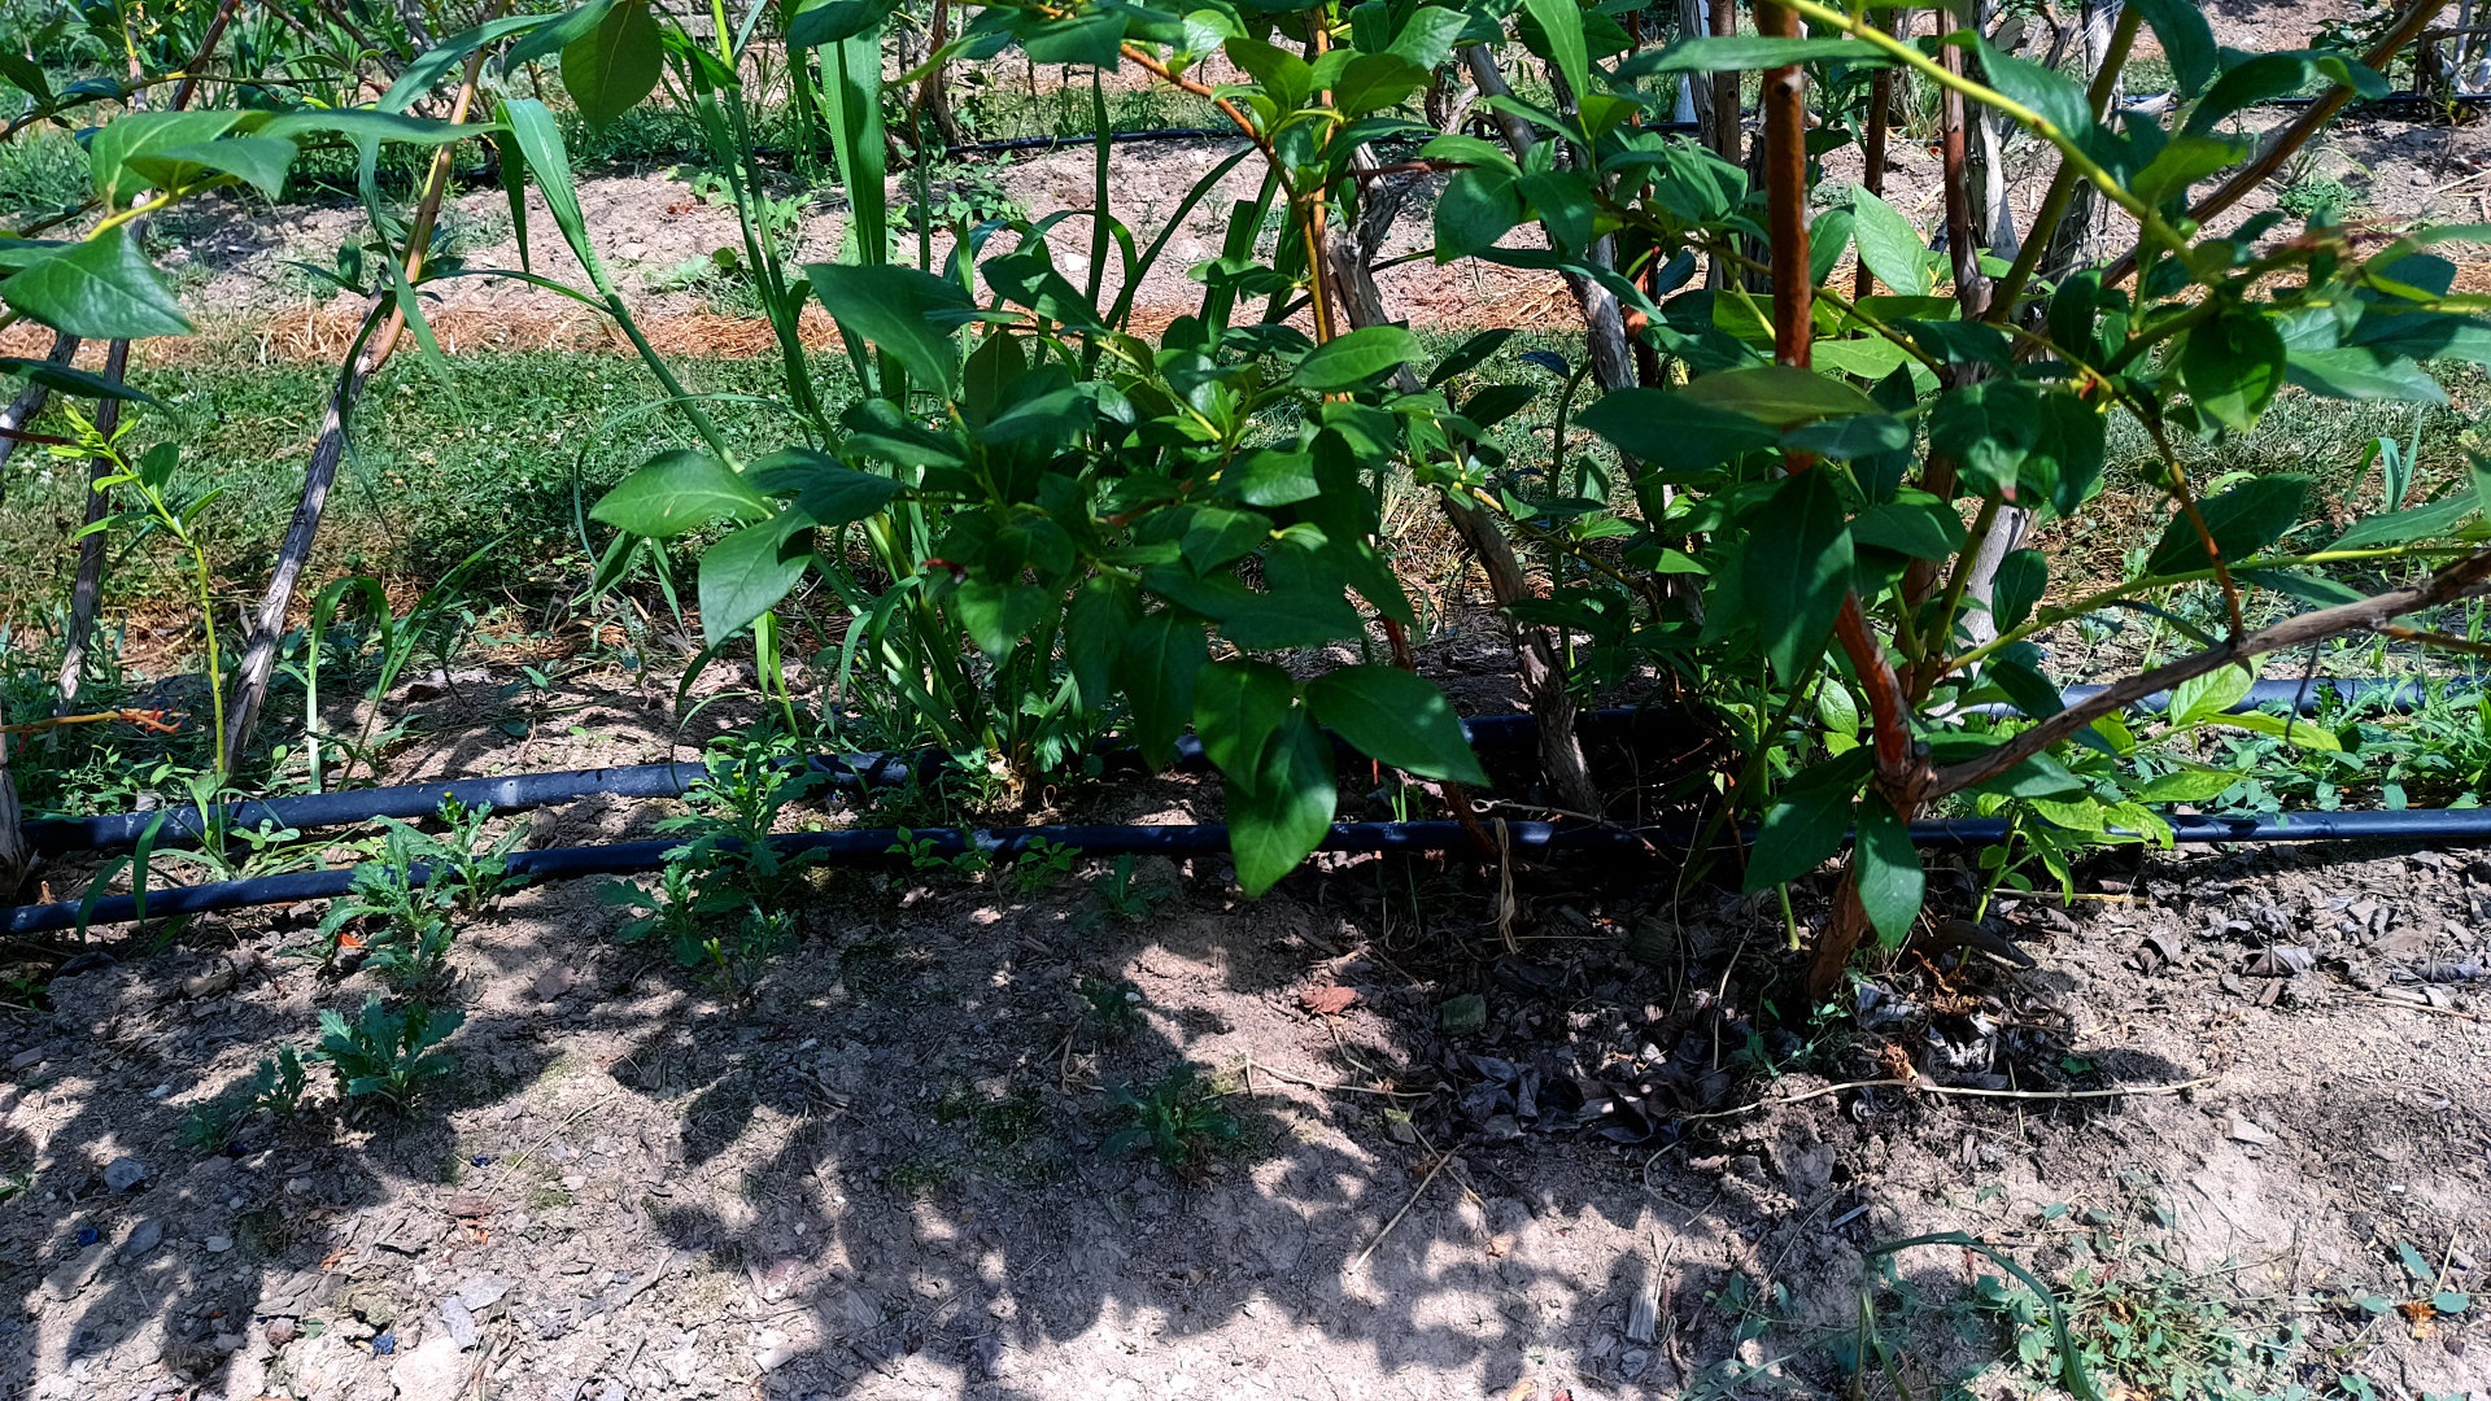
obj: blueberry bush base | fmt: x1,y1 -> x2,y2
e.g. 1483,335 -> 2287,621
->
1296,416 -> 2124,1123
